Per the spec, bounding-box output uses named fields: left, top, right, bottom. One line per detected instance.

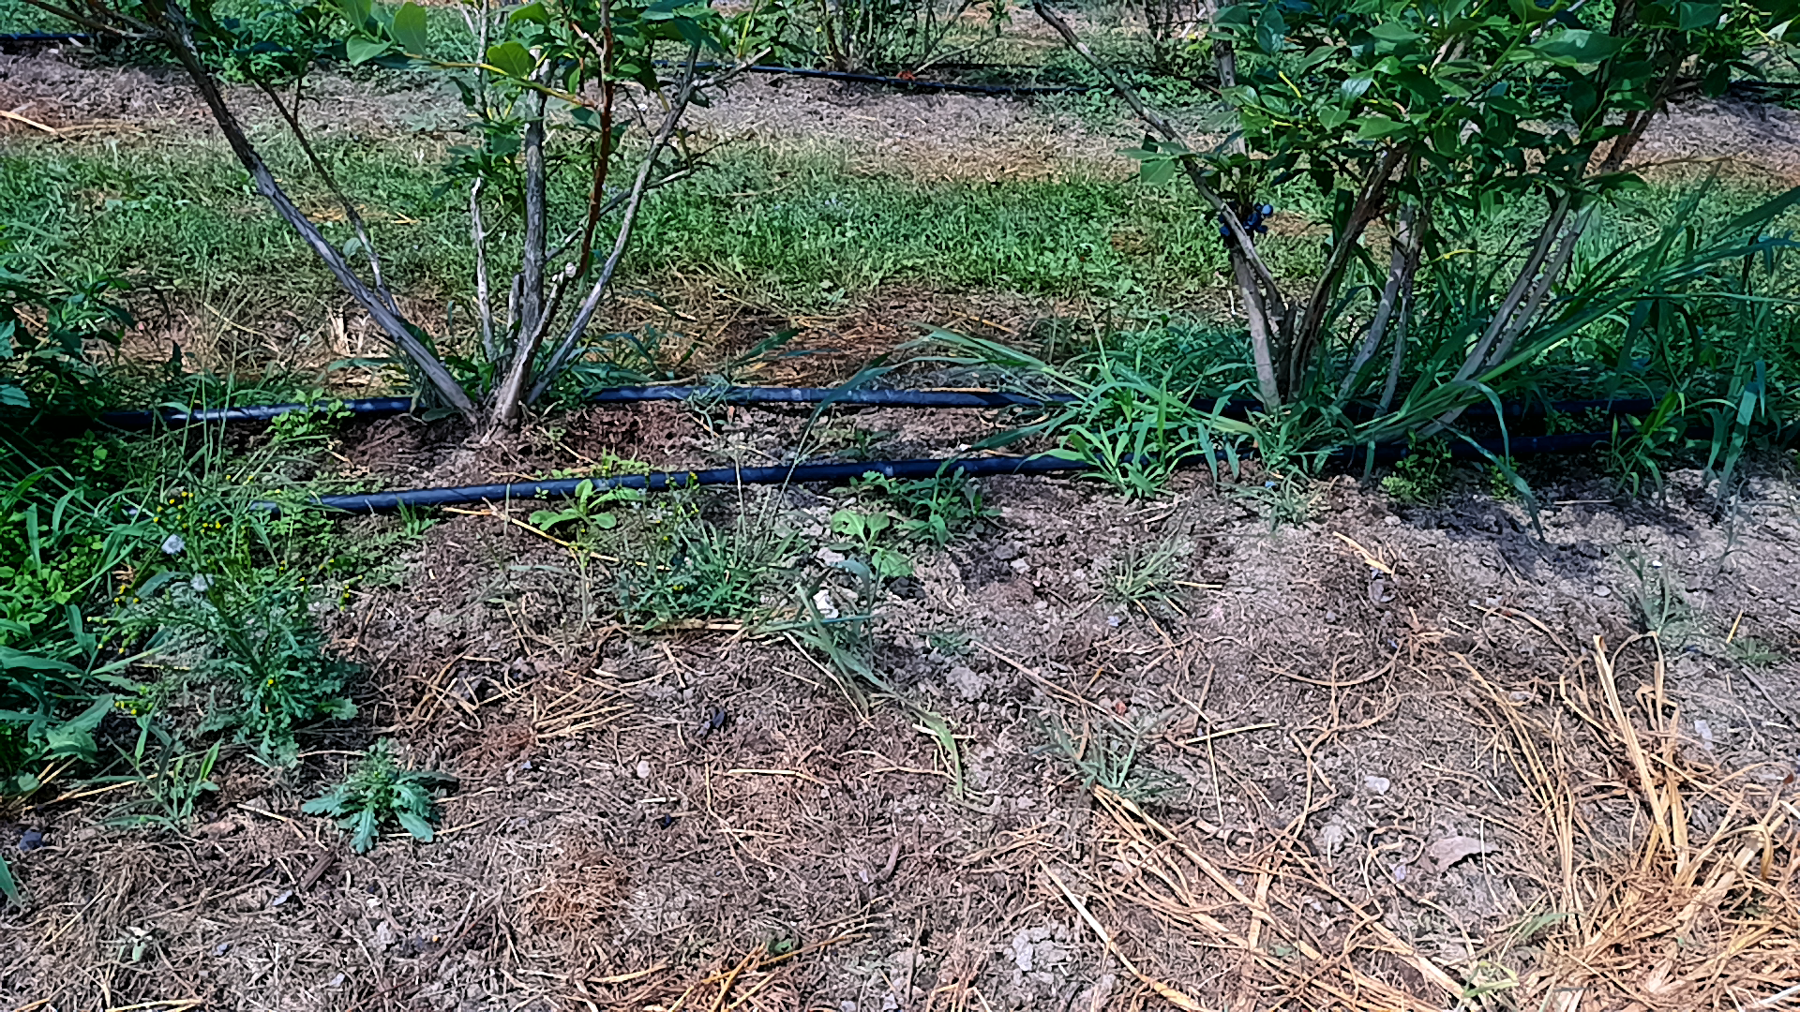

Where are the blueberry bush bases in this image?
left=1190, top=247, right=1593, bottom=511
left=791, top=26, right=944, bottom=102
left=286, top=230, right=664, bottom=502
